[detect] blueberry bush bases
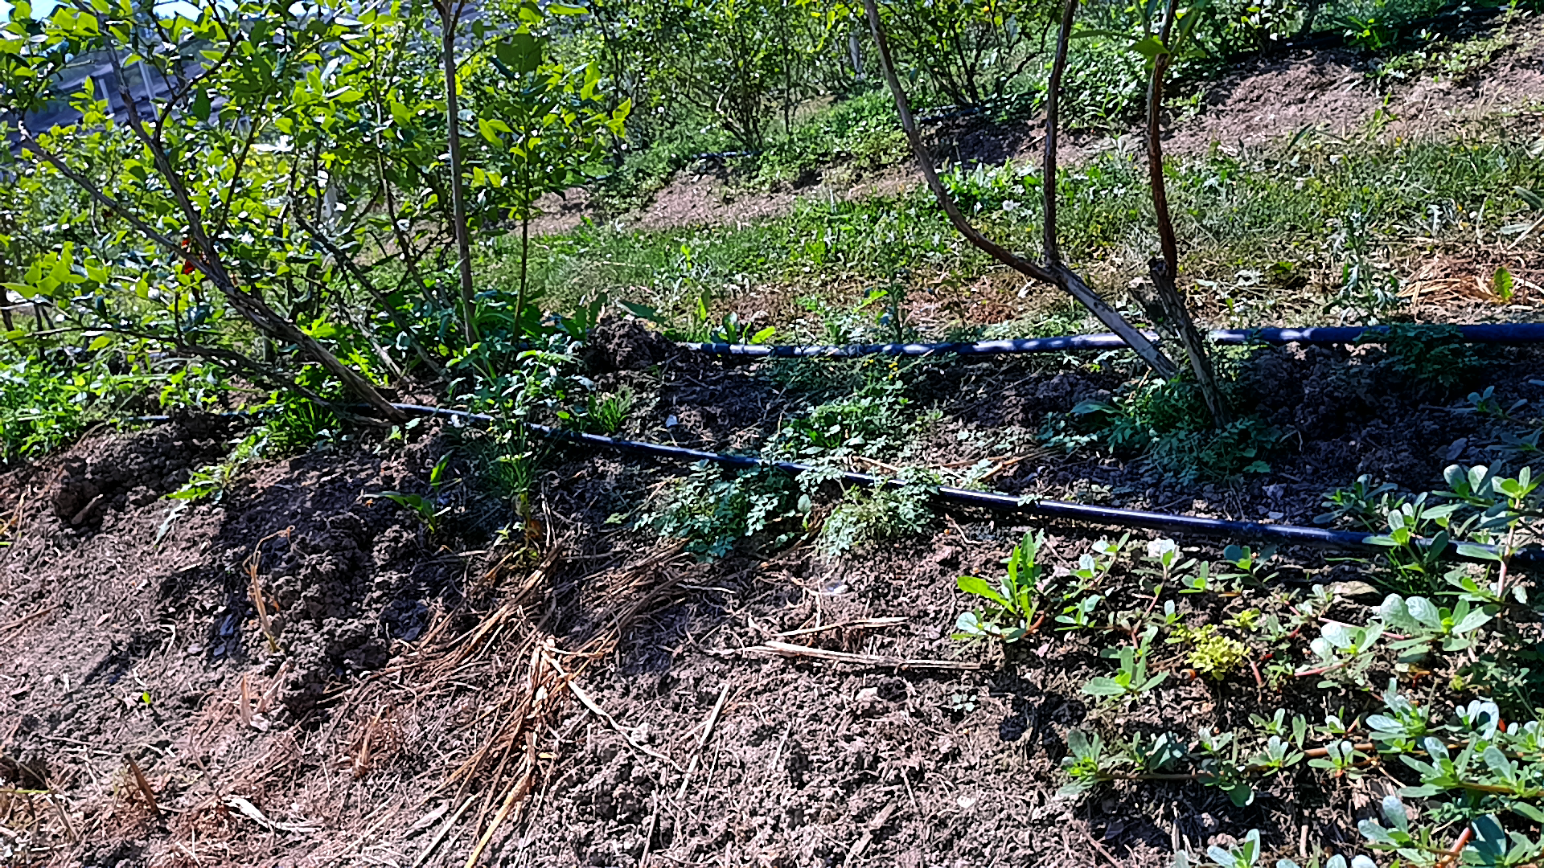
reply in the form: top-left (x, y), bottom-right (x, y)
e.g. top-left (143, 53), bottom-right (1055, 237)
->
top-left (1010, 217), bottom-right (1312, 474)
top-left (212, 218), bottom-right (586, 470)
